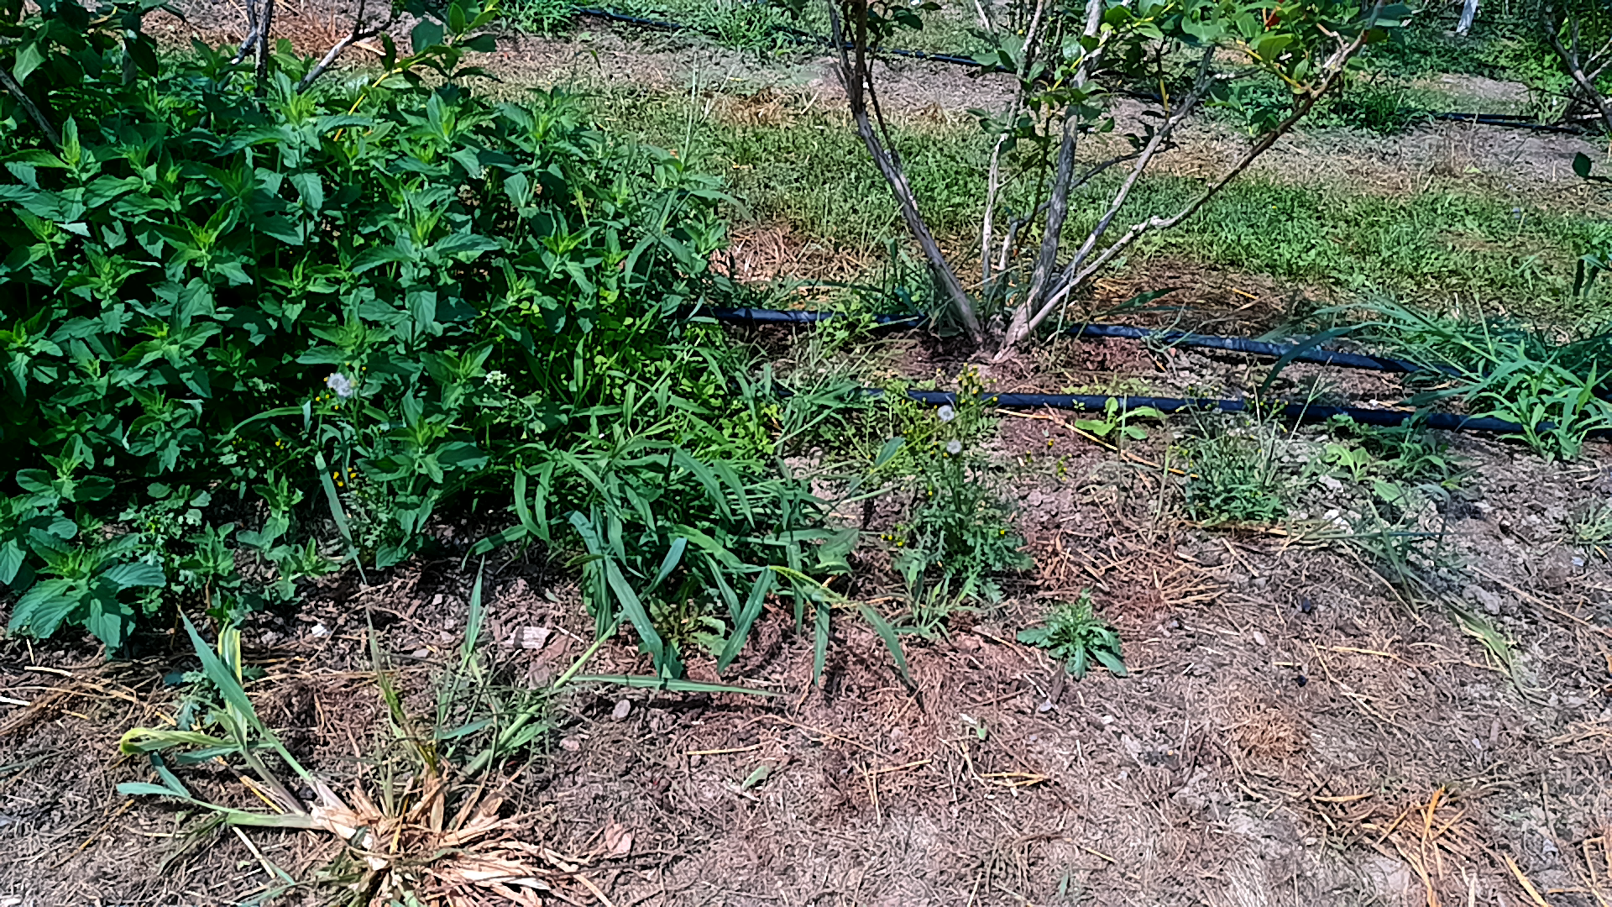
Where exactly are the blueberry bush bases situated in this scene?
[1526,42,1612,134]
[854,173,1176,418]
